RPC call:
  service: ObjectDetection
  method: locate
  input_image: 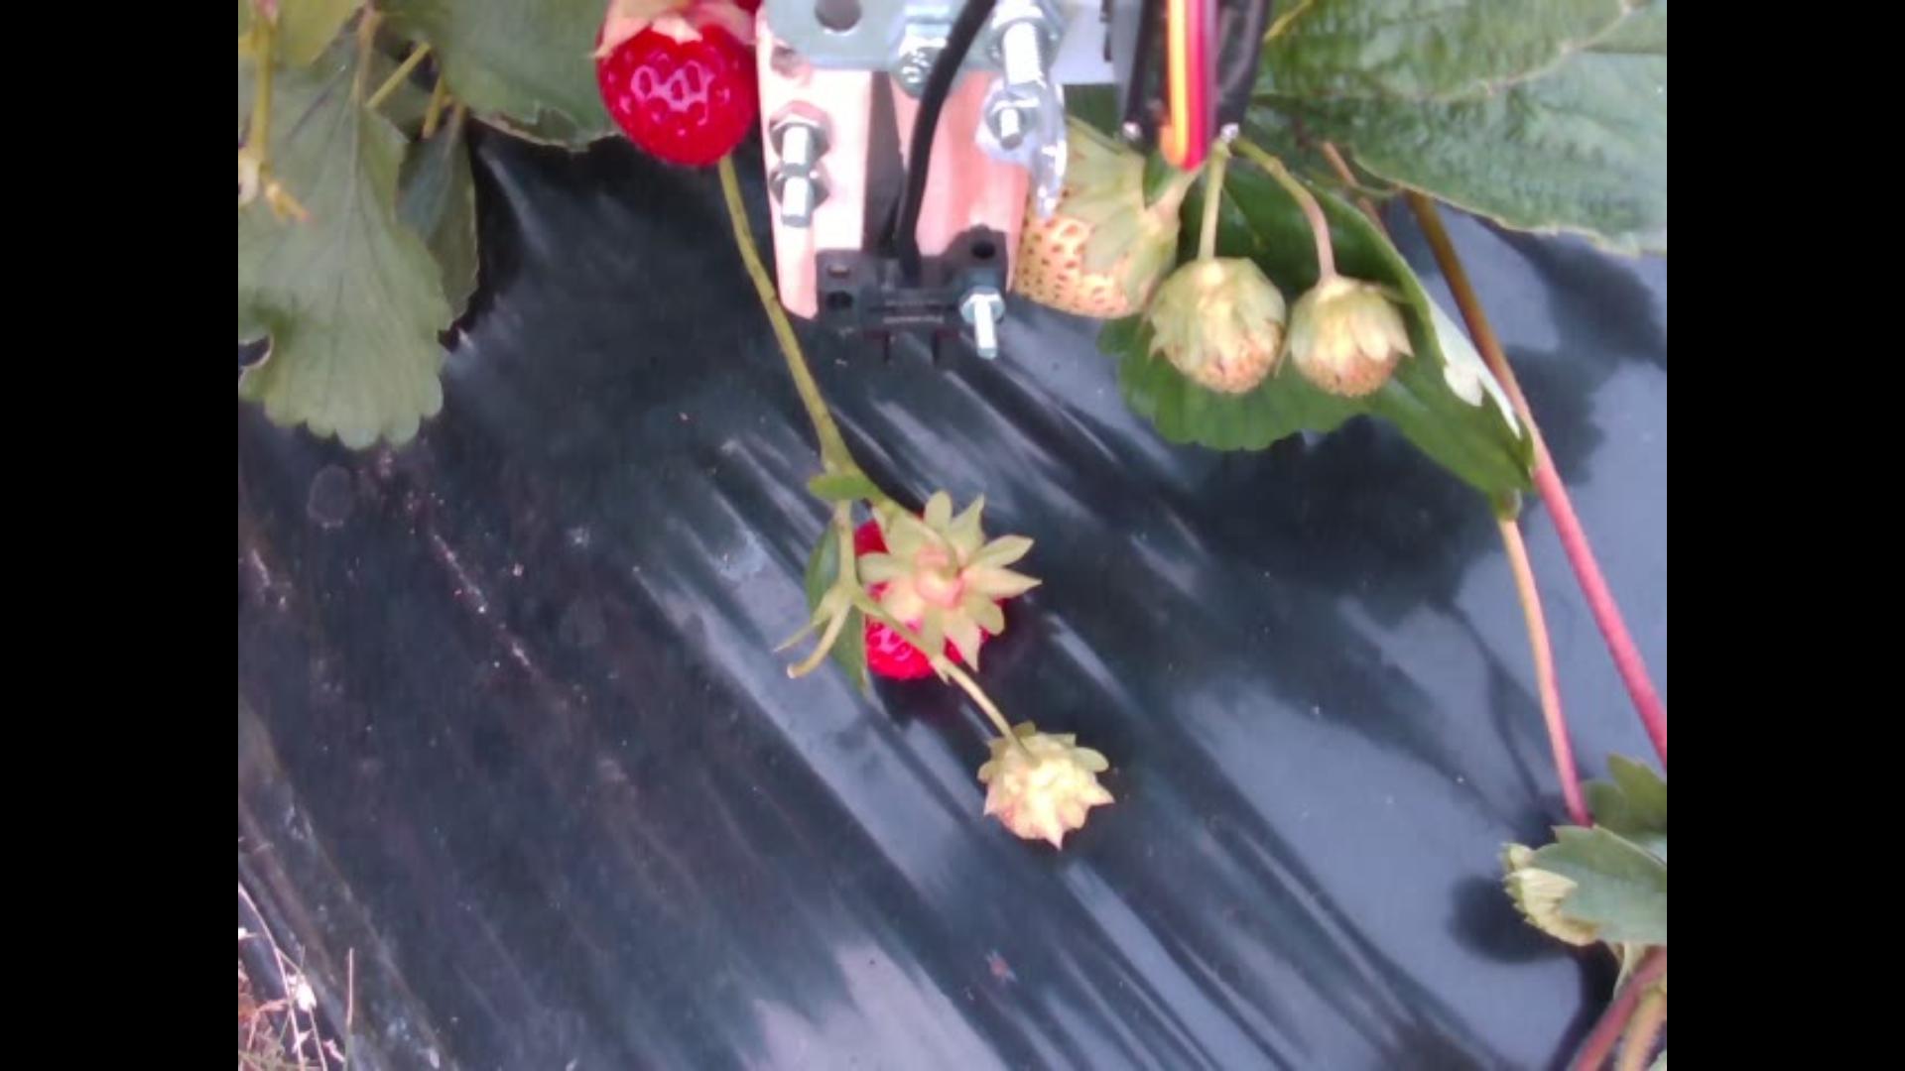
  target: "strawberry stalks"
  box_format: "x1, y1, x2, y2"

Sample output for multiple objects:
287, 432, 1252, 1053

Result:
1184, 180, 1238, 292
849, 474, 971, 588
976, 690, 1042, 755
1150, 140, 1198, 218
1296, 216, 1362, 313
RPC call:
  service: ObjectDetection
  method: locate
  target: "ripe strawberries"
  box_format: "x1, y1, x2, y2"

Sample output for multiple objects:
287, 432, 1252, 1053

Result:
823, 498, 1024, 684
598, 0, 777, 167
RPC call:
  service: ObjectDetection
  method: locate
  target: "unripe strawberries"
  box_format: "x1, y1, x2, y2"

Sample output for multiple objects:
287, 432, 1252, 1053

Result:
982, 723, 1114, 850
1006, 108, 1163, 330
1145, 252, 1291, 400
1286, 275, 1411, 403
